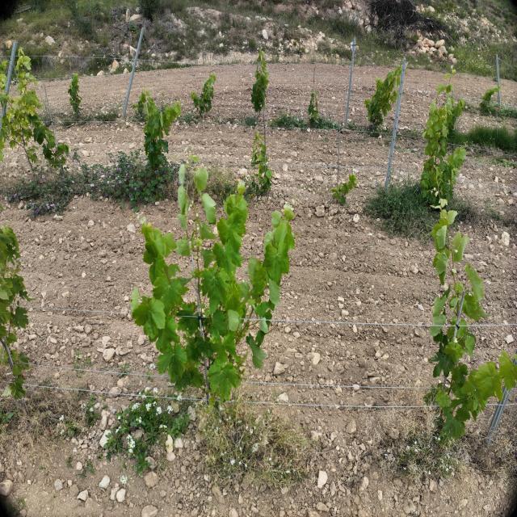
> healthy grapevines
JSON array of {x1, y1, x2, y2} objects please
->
[
  {"x1": 126, "y1": 158, "x2": 304, "y2": 429},
  {"x1": 414, "y1": 181, "x2": 517, "y2": 454}
]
